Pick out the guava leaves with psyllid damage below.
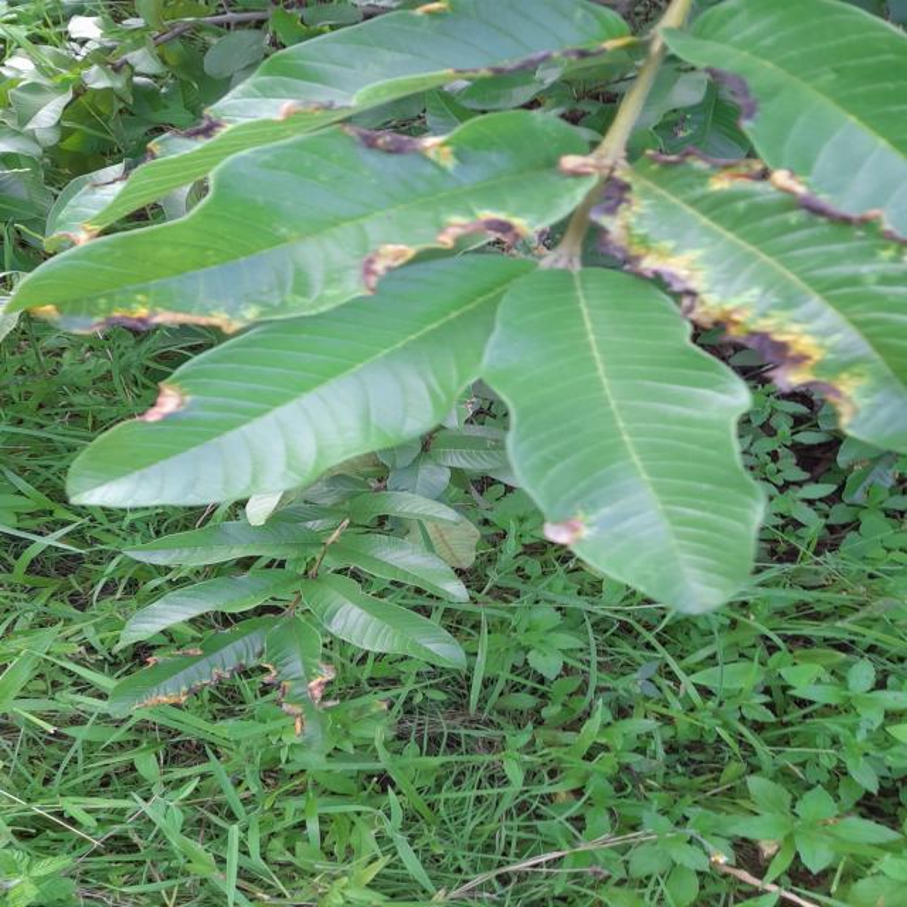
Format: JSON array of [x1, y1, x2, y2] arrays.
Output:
[[451, 254, 799, 615], [13, 99, 648, 361]]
